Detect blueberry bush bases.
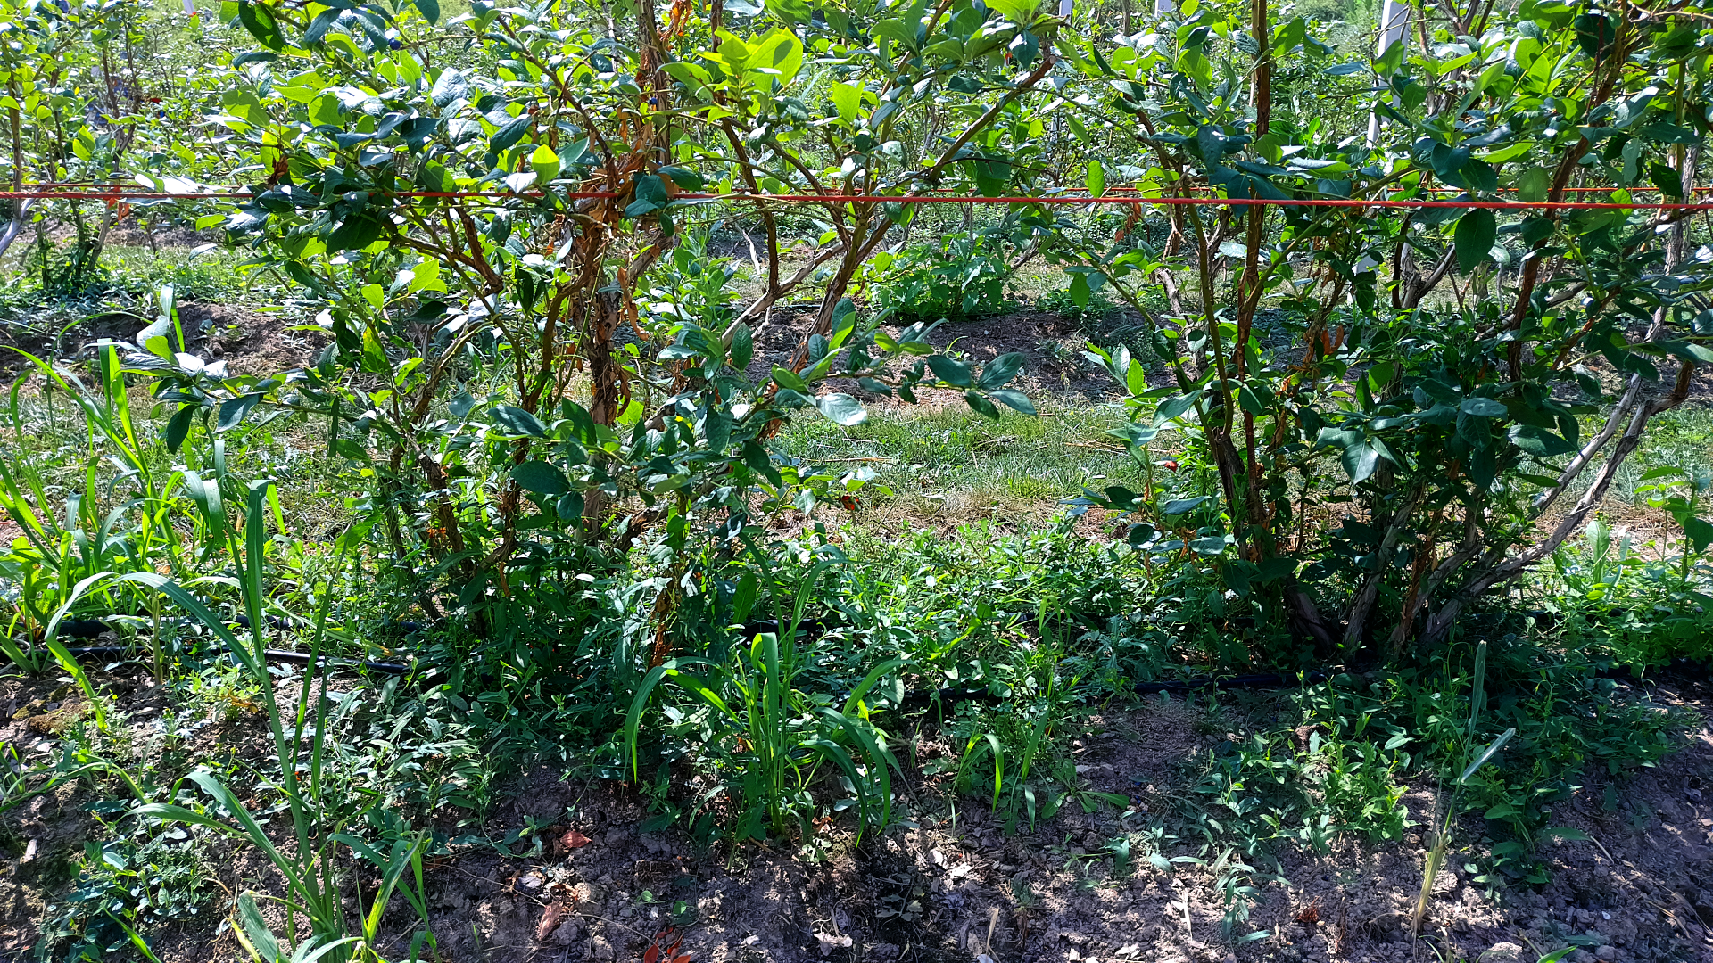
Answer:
[1163,440,1626,758]
[350,461,775,752]
[863,251,1029,330]
[21,245,125,319]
